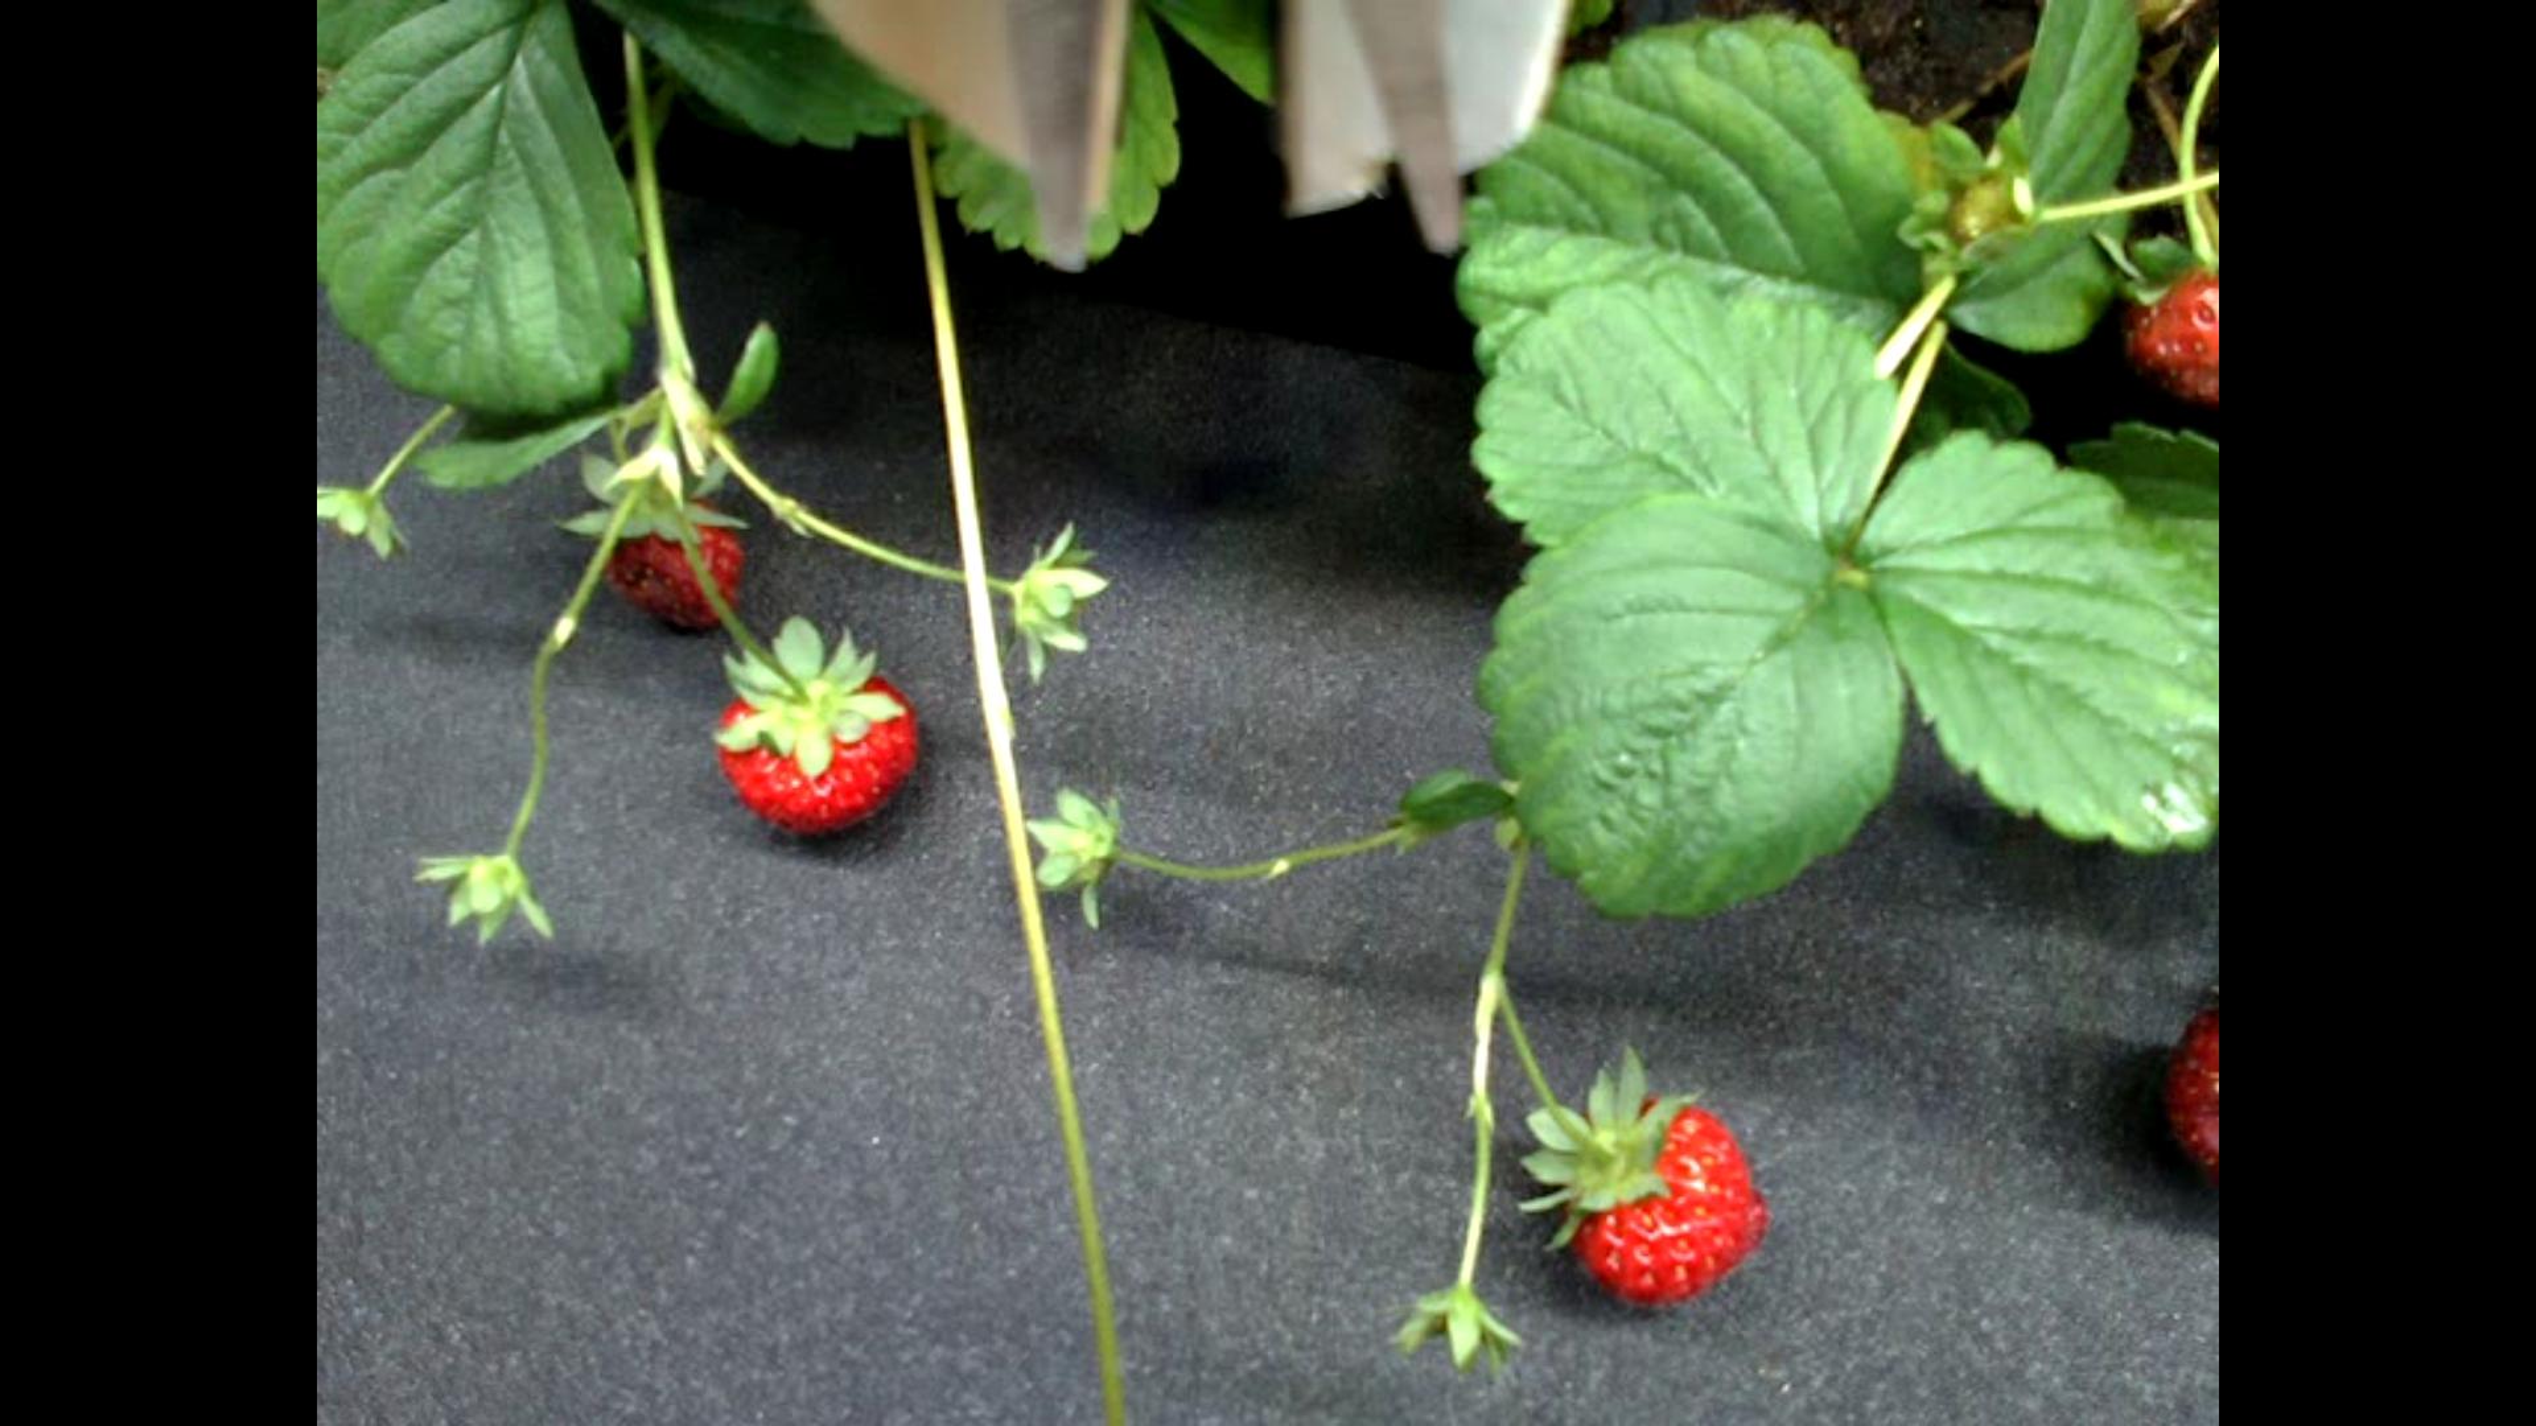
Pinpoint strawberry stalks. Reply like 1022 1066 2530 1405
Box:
628 395 685 517
1508 1004 1648 1200
352 394 448 520
1427 1111 1495 1320
680 522 841 712
483 711 548 899
2166 15 2214 280
1062 794 1251 899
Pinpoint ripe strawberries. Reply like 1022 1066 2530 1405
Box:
2107 252 2214 422
1559 1114 1798 1303
692 660 929 833
2167 985 2225 1207
588 511 758 639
